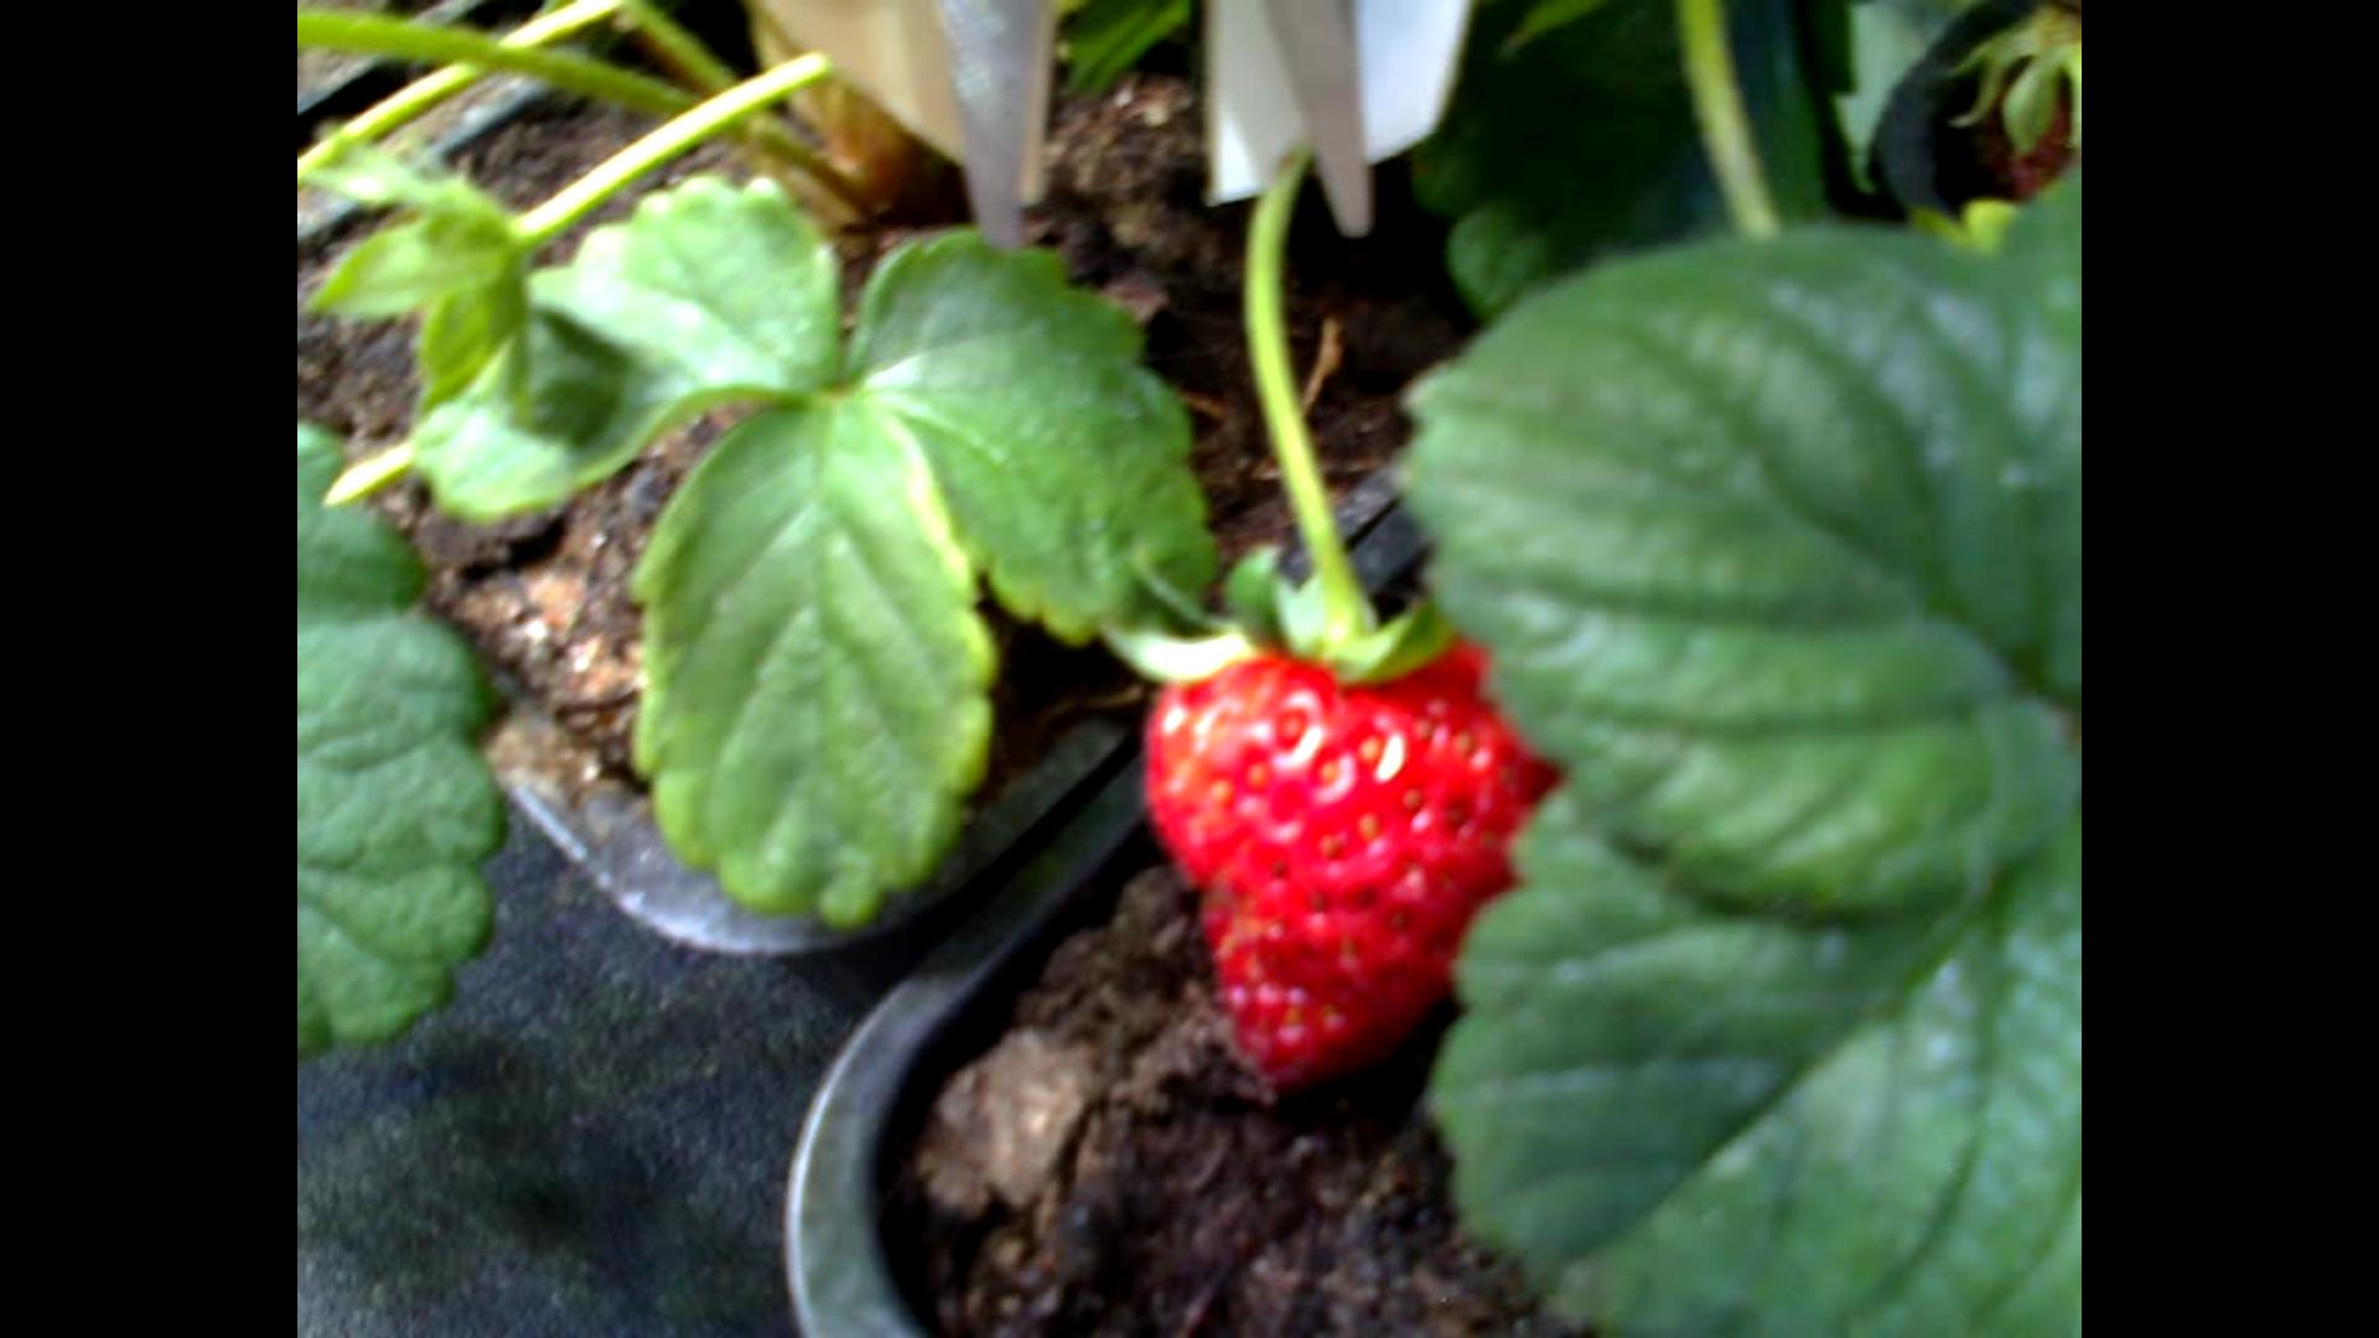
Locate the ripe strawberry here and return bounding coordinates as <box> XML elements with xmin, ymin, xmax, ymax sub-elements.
<box><xmin>1106</xmin><ymin>627</ymin><xmax>1547</xmax><ymax>1107</ymax></box>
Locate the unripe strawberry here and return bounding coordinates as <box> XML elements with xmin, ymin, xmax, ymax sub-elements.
<box><xmin>1252</xmin><ymin>447</ymin><xmax>1427</xmax><ymax>693</ymax></box>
